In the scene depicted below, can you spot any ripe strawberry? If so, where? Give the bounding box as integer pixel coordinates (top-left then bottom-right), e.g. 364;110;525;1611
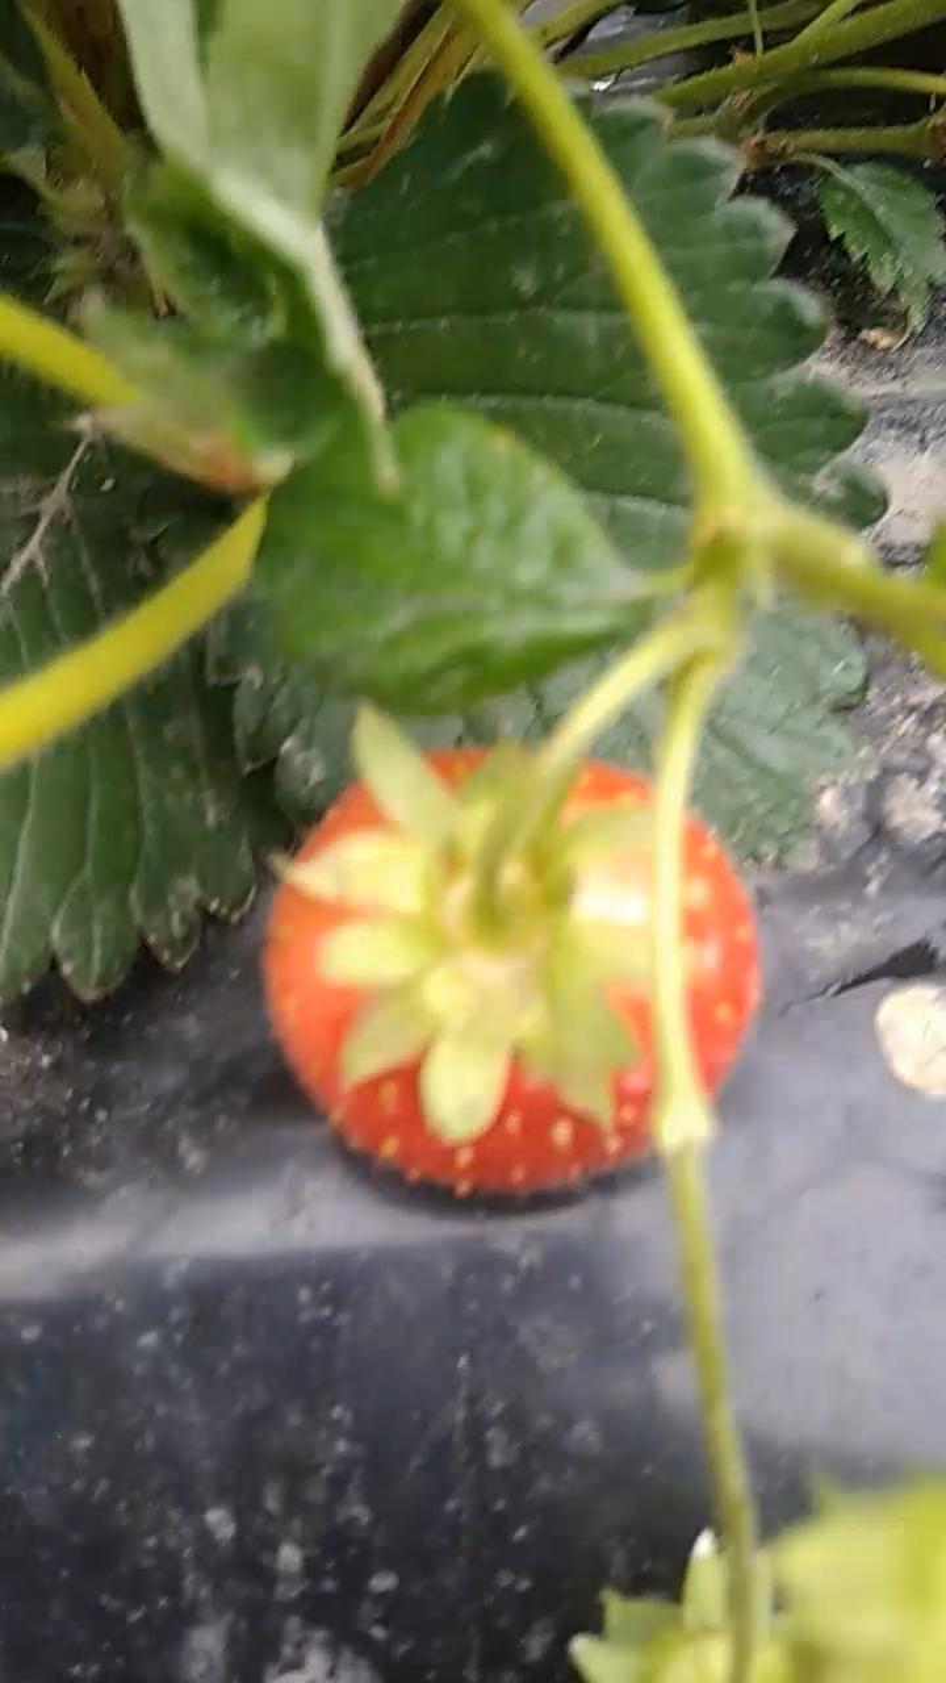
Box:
259;733;763;1216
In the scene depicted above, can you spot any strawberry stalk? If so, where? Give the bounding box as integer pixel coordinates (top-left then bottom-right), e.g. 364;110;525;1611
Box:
403;573;748;995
